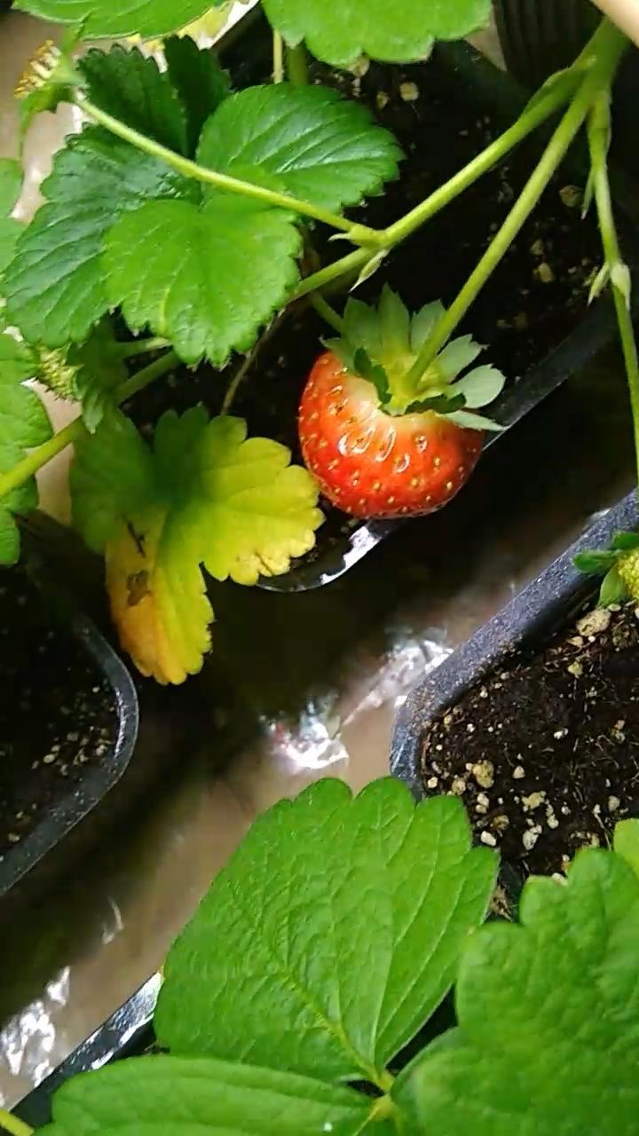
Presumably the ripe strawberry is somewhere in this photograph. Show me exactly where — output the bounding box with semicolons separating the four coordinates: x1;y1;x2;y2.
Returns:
296;341;477;519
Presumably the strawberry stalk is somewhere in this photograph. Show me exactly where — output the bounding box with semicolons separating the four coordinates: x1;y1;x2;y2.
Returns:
381;163;551;427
